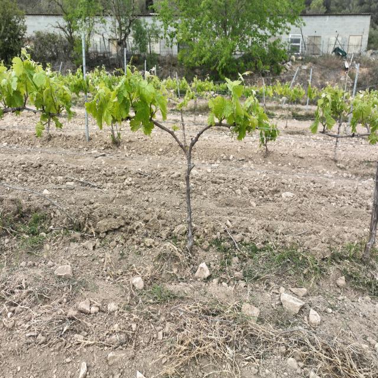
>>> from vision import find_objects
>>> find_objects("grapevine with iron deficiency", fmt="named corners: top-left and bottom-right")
top-left (82, 73), bottom-right (282, 260)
